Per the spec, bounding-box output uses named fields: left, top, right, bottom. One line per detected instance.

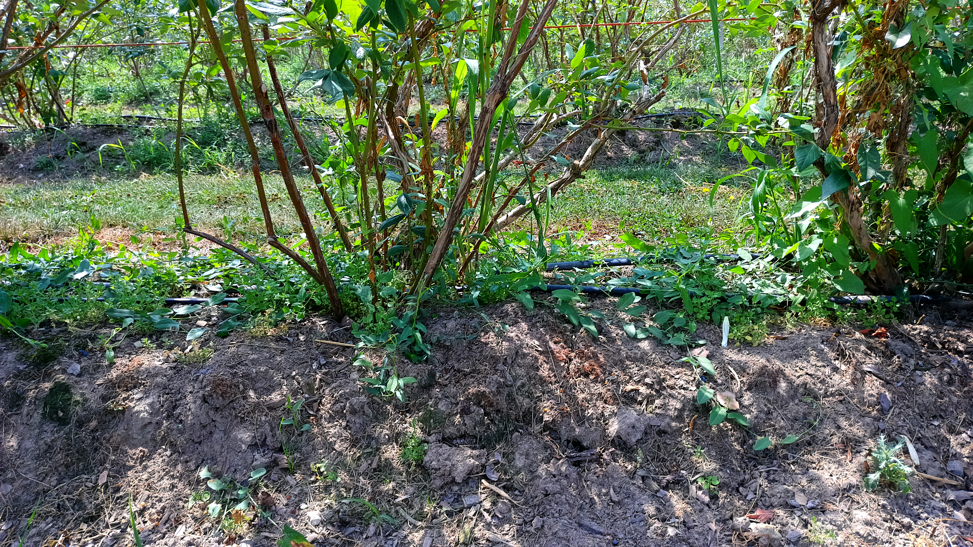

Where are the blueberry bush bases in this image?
left=233, top=196, right=517, bottom=353
left=801, top=159, right=973, bottom=360
left=0, top=81, right=91, bottom=159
